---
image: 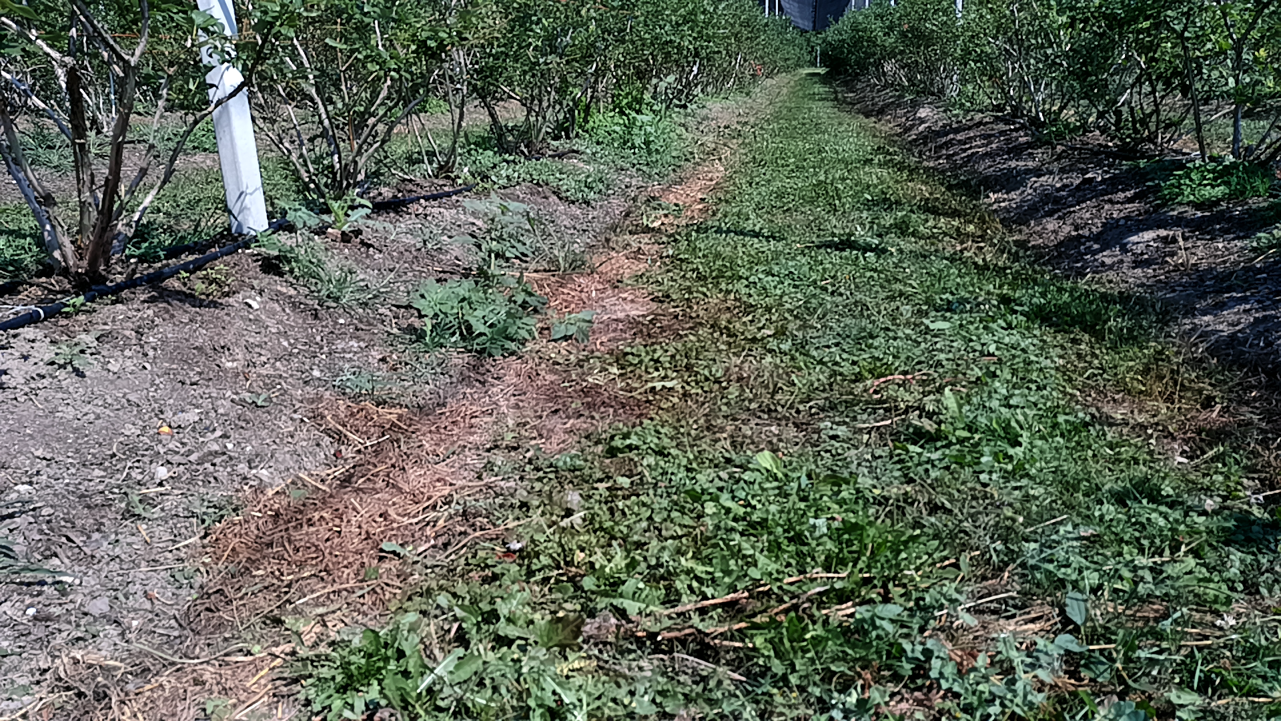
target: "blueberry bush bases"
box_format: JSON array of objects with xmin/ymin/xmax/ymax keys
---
[
  {"xmin": 3, "ymin": 177, "xmax": 177, "ymax": 319},
  {"xmin": 477, "ymin": 114, "xmax": 568, "ymax": 174},
  {"xmin": 993, "ymin": 85, "xmax": 1078, "ymax": 143},
  {"xmin": 1202, "ymin": 109, "xmax": 1279, "ymax": 204},
  {"xmin": 1106, "ymin": 103, "xmax": 1178, "ymax": 170},
  {"xmin": 396, "ymin": 126, "xmax": 484, "ymax": 192},
  {"xmin": 278, "ymin": 133, "xmax": 400, "ymax": 227}
]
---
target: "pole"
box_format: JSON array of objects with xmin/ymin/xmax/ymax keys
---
[{"xmin": 199, "ymin": 0, "xmax": 266, "ymax": 252}]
